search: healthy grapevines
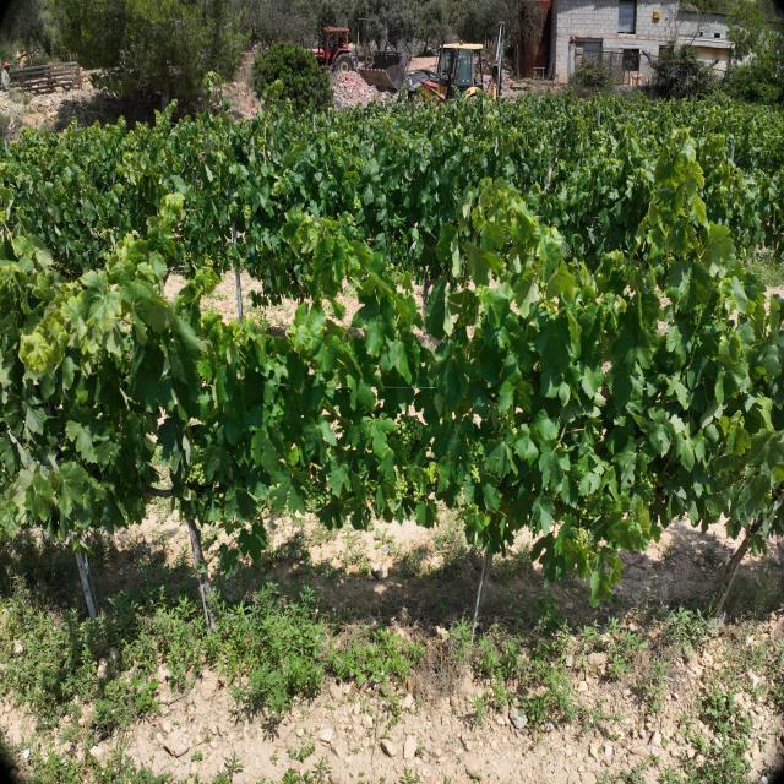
[0,255,333,663]
[339,224,651,675]
[641,220,784,663]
